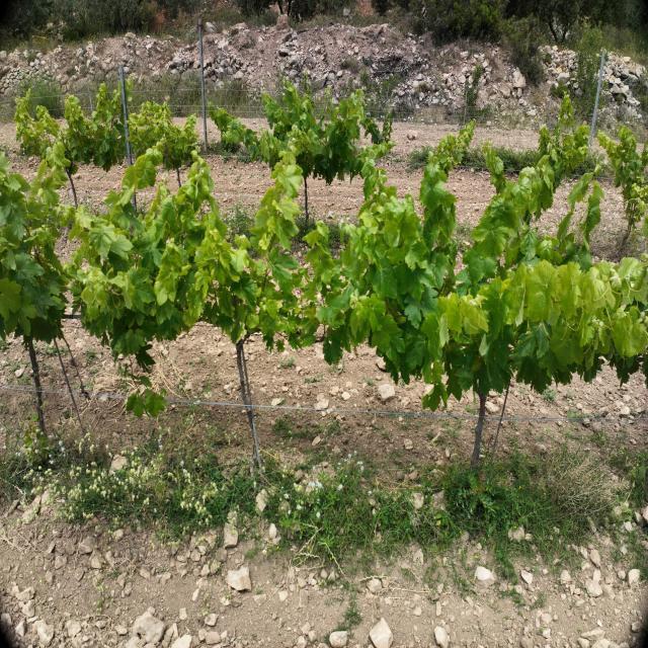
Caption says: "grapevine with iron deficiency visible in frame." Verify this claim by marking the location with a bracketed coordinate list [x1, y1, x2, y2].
[71, 143, 355, 505]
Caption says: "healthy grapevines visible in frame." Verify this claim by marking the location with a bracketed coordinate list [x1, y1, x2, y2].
[0, 156, 83, 484]
[344, 147, 648, 501]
